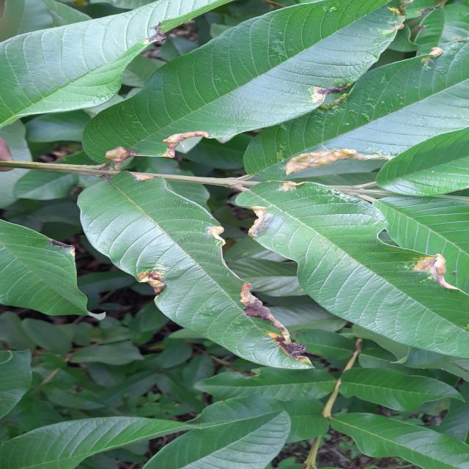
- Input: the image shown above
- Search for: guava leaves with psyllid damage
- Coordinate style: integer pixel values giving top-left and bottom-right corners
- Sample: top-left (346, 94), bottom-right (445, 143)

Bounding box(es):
top-left (238, 175), bottom-right (469, 360)
top-left (70, 173), bottom-right (319, 385)
top-left (75, 0), bottom-right (413, 173)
